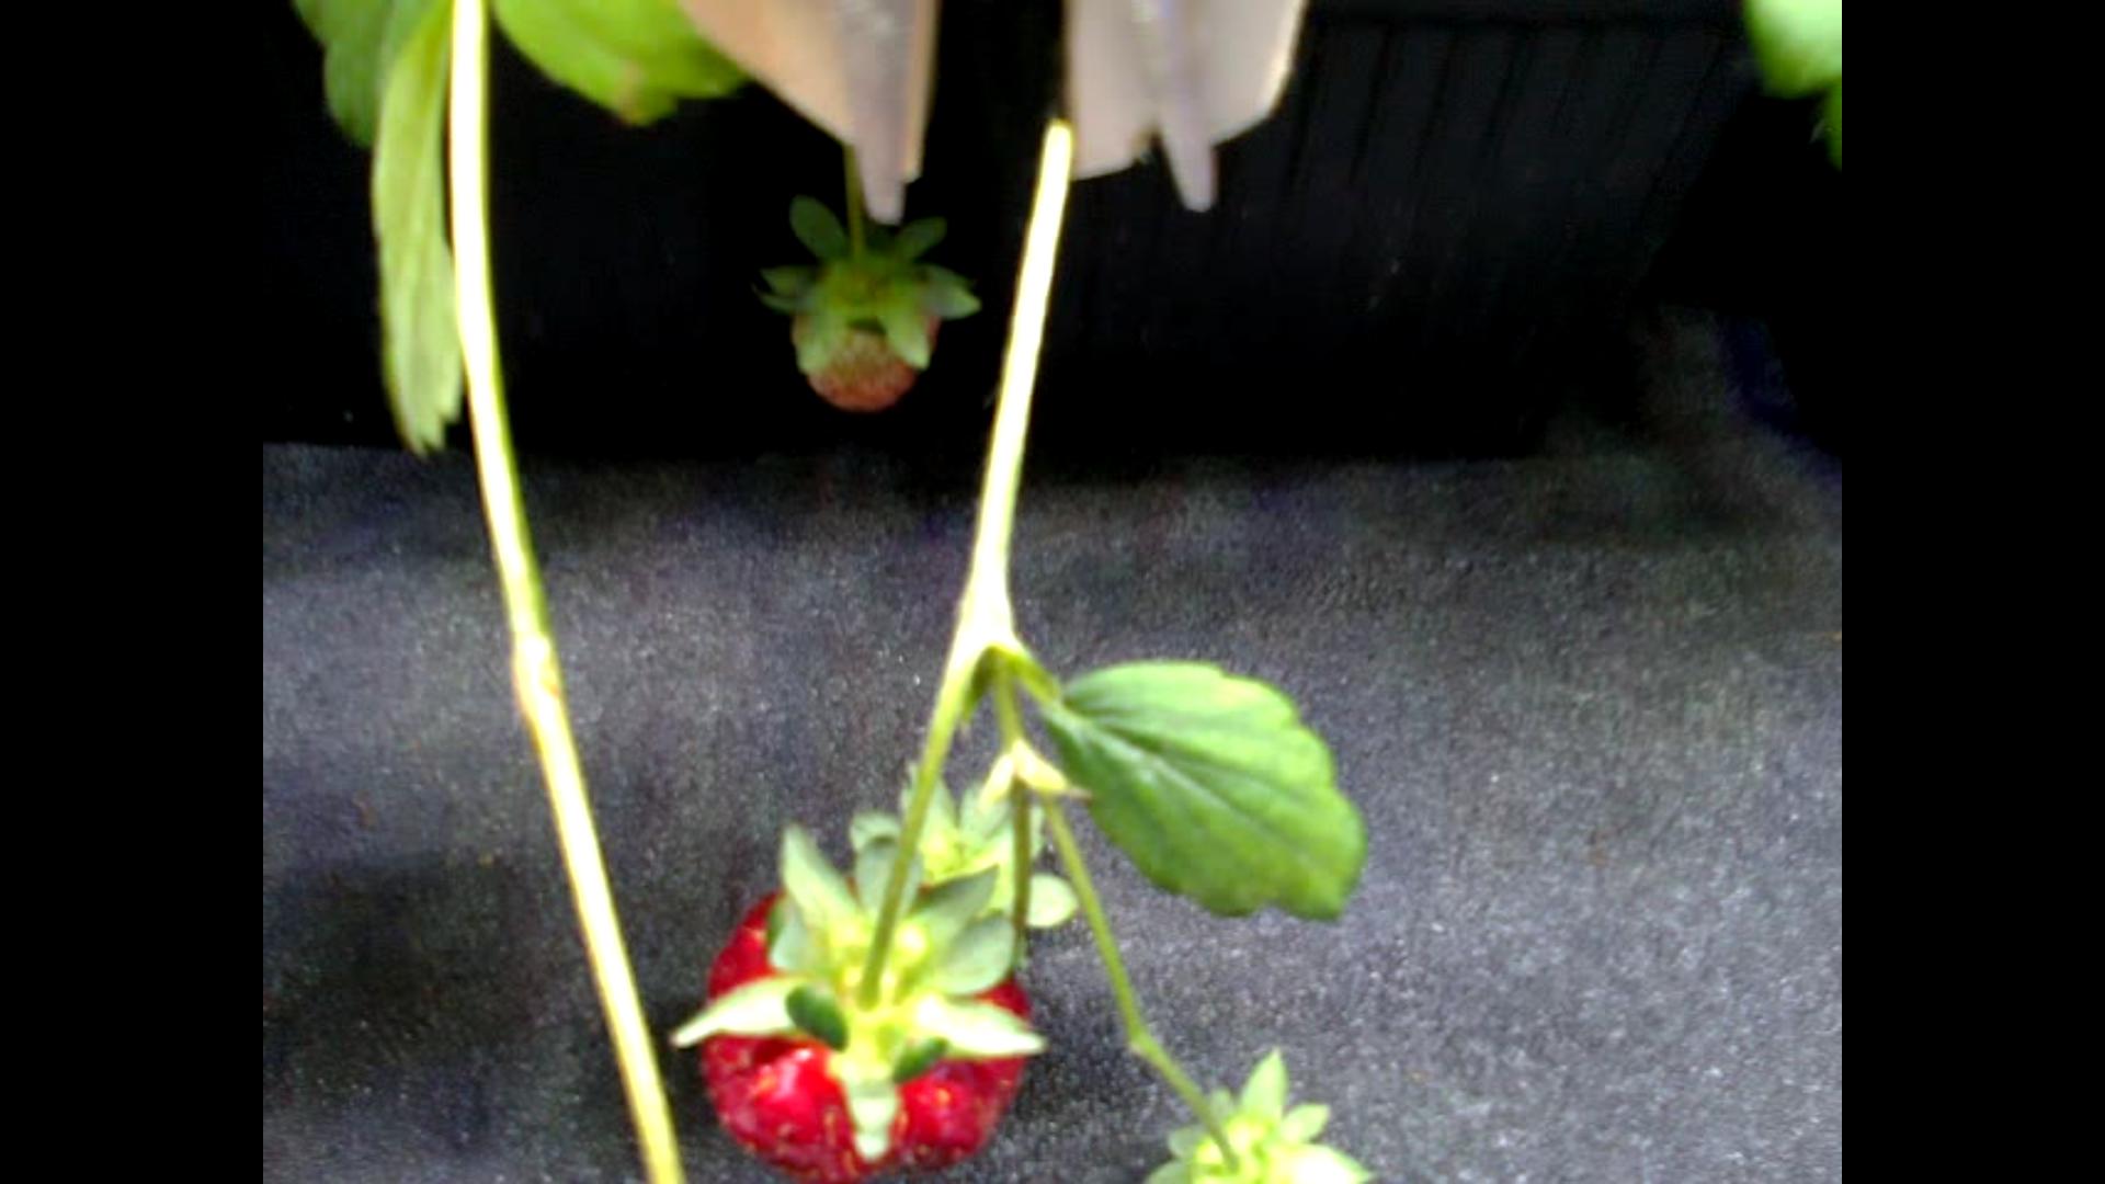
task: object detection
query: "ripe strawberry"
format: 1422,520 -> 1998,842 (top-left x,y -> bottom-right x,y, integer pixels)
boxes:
670,865 -> 1057,1183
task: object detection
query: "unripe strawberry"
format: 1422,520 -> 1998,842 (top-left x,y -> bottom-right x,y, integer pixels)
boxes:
775,264 -> 943,415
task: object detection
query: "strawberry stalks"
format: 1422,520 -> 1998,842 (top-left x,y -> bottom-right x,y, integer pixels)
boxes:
1103,993 -> 1260,1169
838,175 -> 884,308
806,656 -> 1003,1038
